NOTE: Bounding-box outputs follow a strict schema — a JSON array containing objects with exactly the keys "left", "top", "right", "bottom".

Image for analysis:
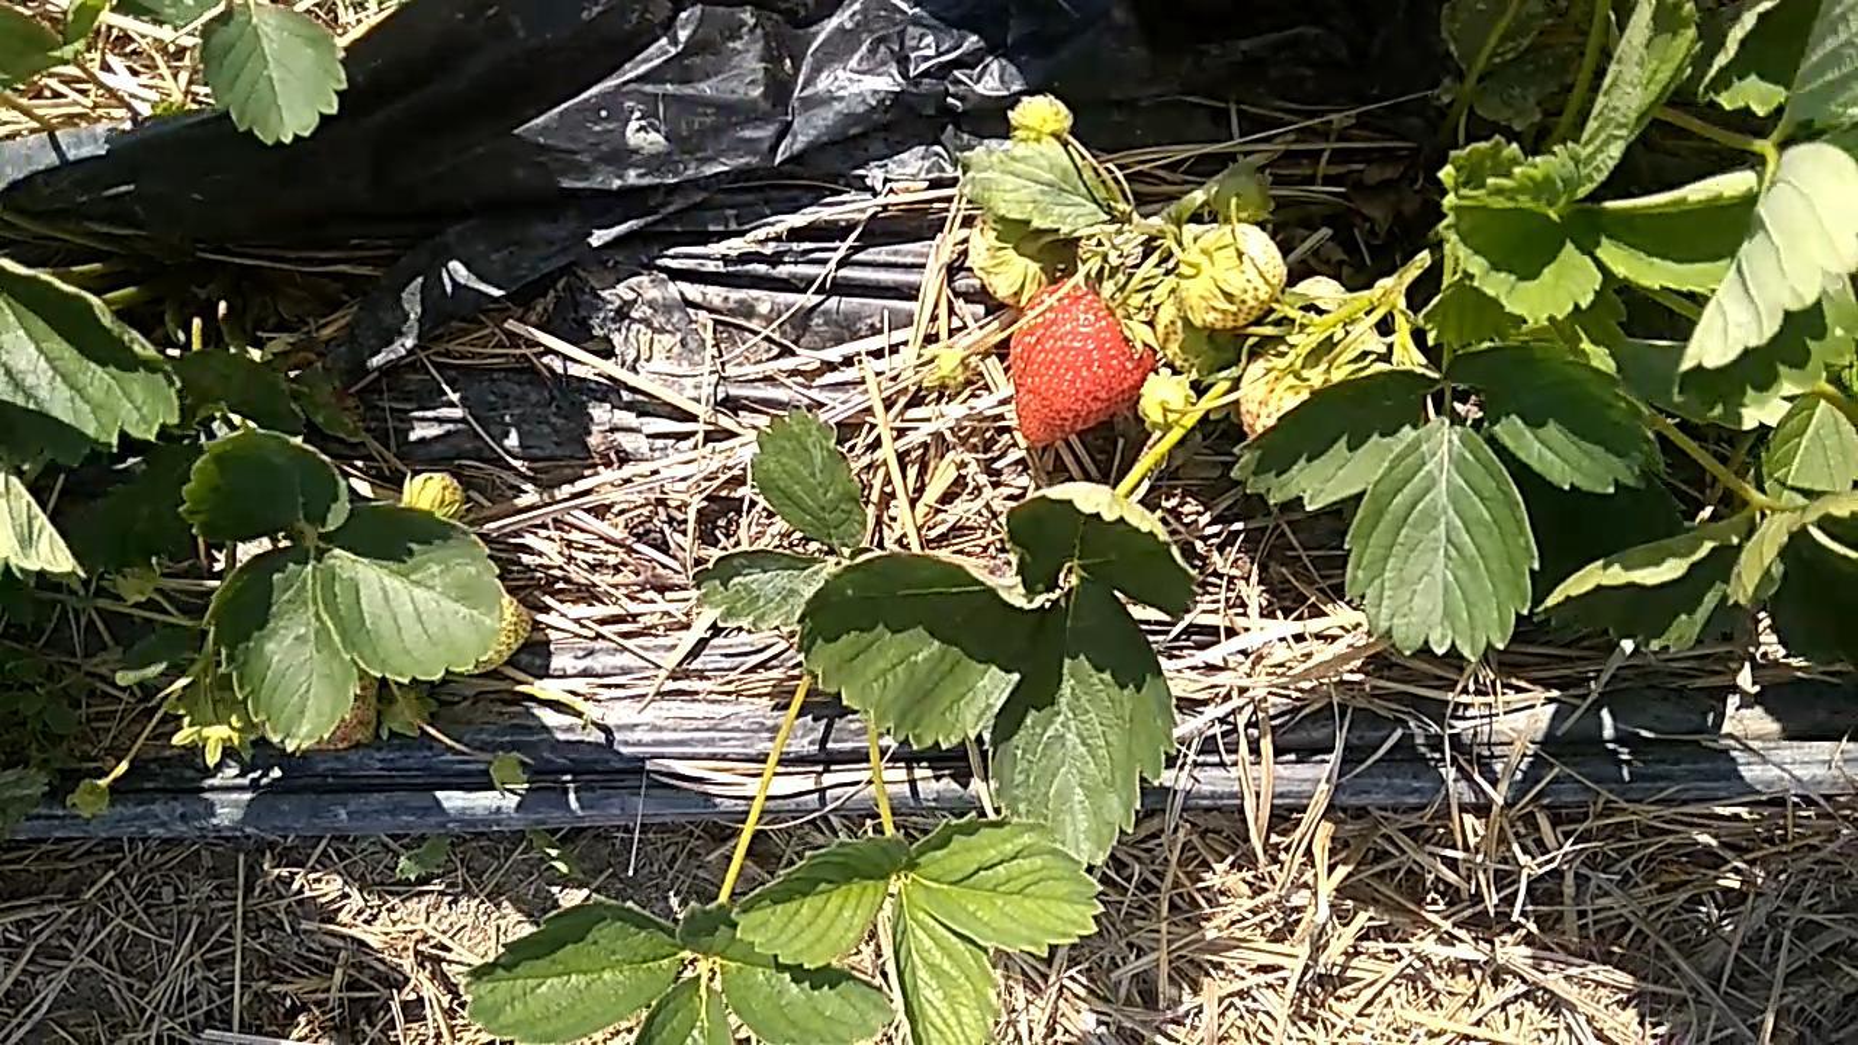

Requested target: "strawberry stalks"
[
  {"left": 1157, "top": 216, "right": 1212, "bottom": 289},
  {"left": 1102, "top": 257, "right": 1163, "bottom": 332},
  {"left": 1057, "top": 115, "right": 1105, "bottom": 173},
  {"left": 1296, "top": 316, "right": 1356, "bottom": 398}
]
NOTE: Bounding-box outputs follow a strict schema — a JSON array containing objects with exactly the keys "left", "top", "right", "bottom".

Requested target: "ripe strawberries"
[
  {"left": 1006, "top": 86, "right": 1074, "bottom": 142},
  {"left": 1174, "top": 229, "right": 1289, "bottom": 322},
  {"left": 425, "top": 567, "right": 543, "bottom": 675},
  {"left": 1016, "top": 277, "right": 1154, "bottom": 444},
  {"left": 240, "top": 624, "right": 395, "bottom": 765},
  {"left": 1243, "top": 344, "right": 1360, "bottom": 453},
  {"left": 398, "top": 473, "right": 467, "bottom": 517}
]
